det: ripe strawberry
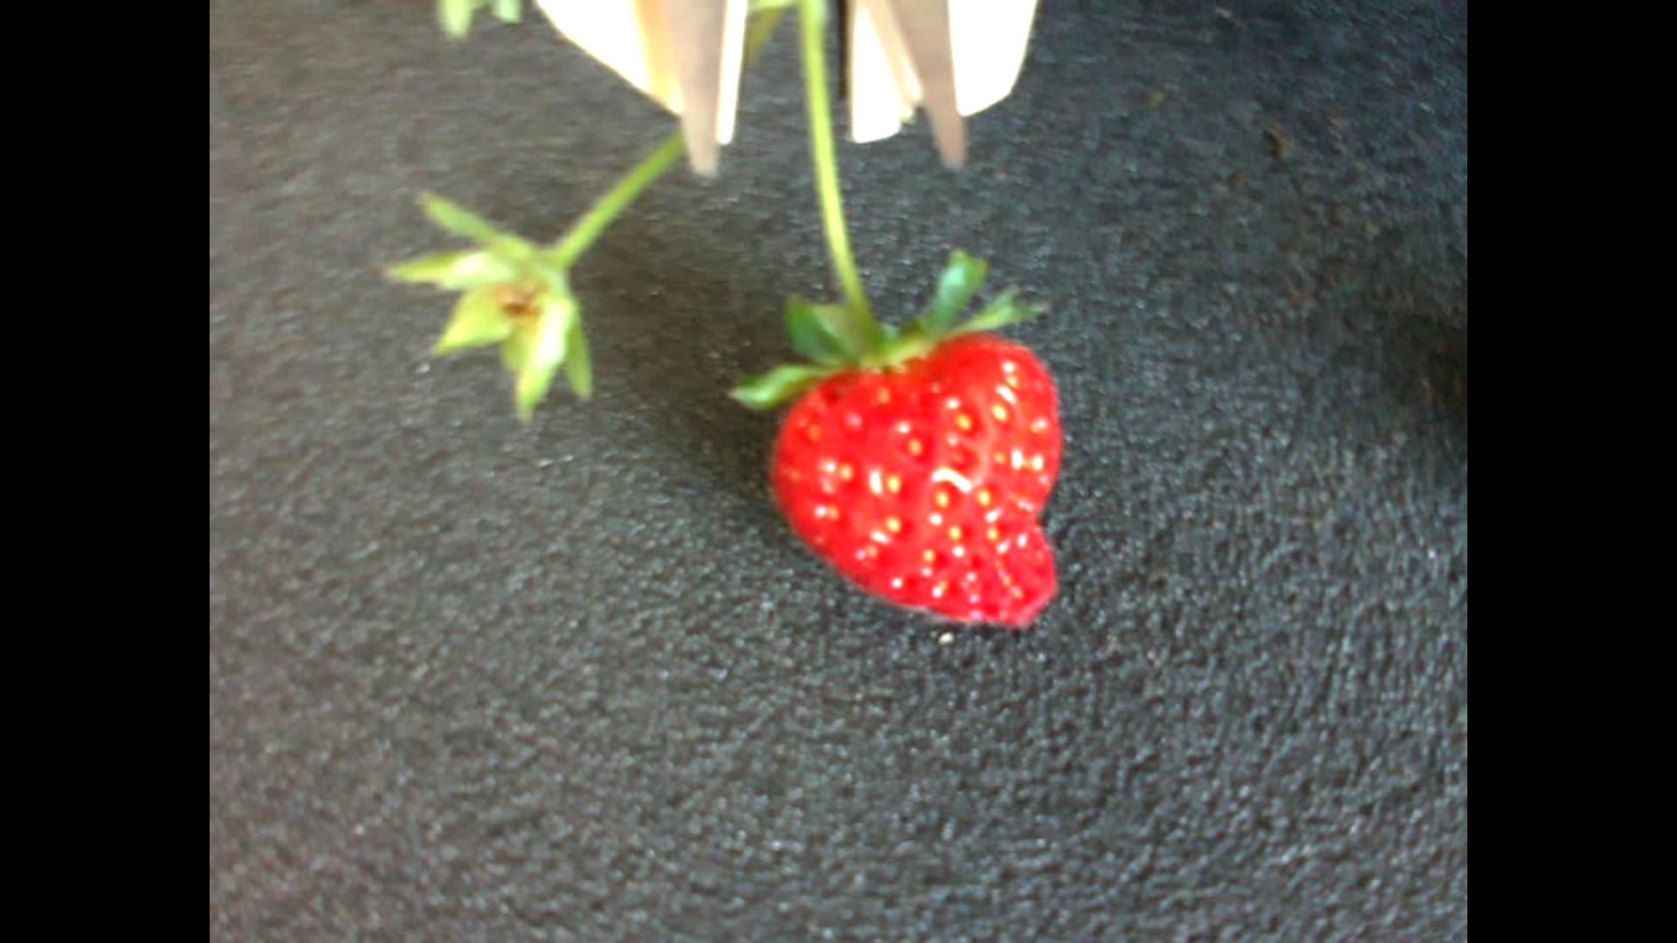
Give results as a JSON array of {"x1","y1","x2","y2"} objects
[{"x1": 720, "y1": 316, "x2": 1115, "y2": 633}]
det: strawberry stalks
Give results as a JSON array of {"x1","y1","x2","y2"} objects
[
  {"x1": 531, "y1": 146, "x2": 673, "y2": 286},
  {"x1": 781, "y1": 31, "x2": 888, "y2": 387}
]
